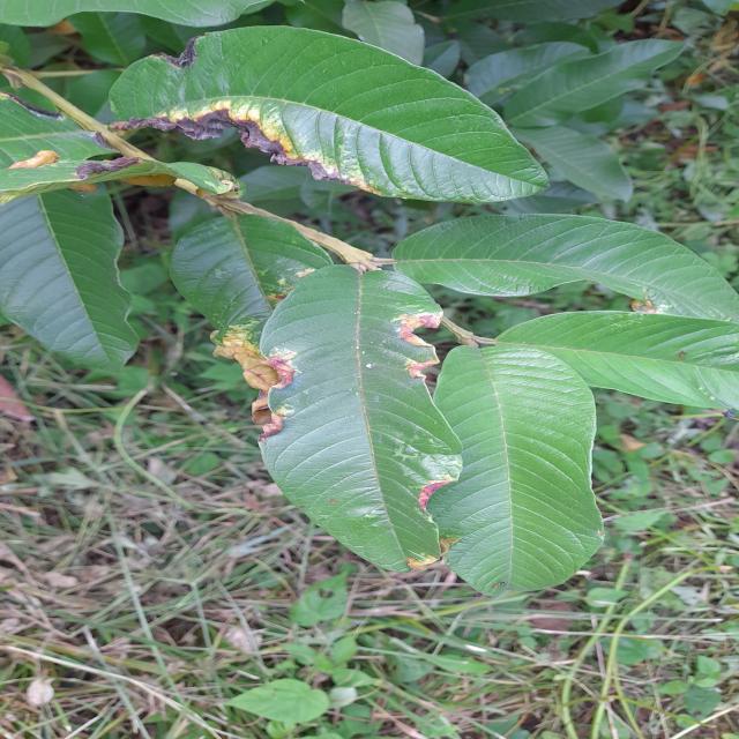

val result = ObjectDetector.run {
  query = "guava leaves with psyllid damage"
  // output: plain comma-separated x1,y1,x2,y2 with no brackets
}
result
241,259,484,592
64,21,589,223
